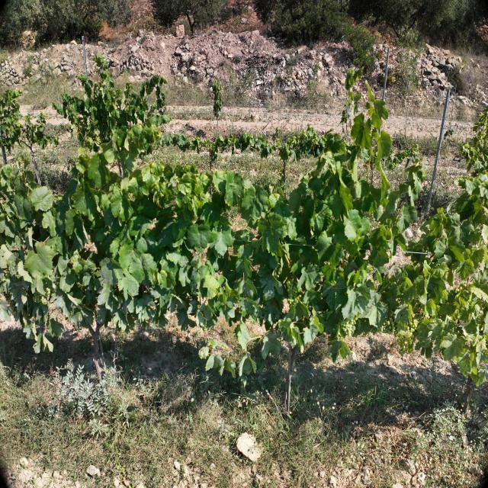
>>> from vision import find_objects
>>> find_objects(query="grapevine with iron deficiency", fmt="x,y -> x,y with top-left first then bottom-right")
390,164 -> 488,423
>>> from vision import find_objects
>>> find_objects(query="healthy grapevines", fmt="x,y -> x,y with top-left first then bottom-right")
214,154 -> 396,432
0,134 -> 217,398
